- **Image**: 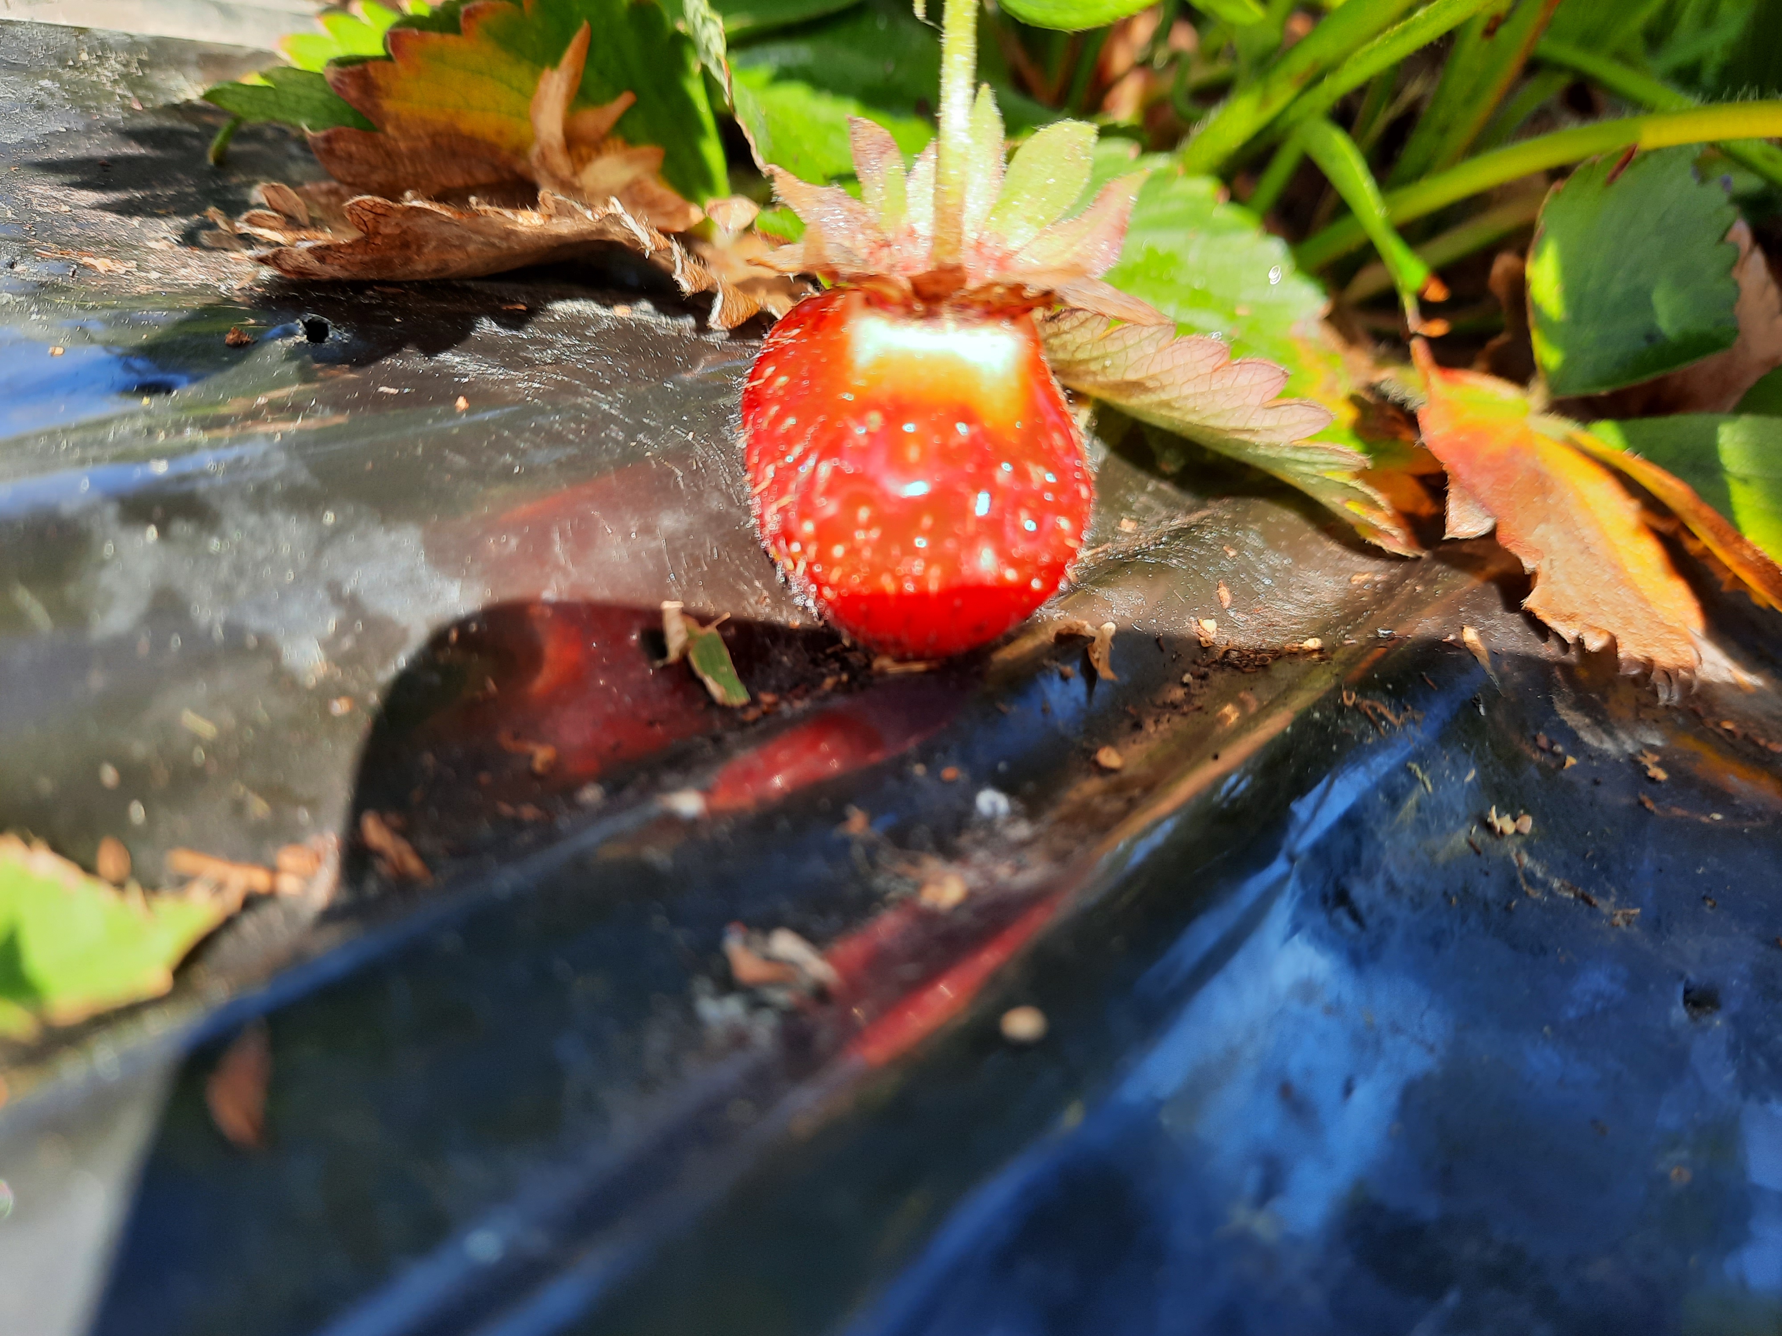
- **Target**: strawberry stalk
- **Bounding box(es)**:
[921,0,980,382]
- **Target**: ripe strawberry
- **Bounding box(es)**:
[750,294,1067,647]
